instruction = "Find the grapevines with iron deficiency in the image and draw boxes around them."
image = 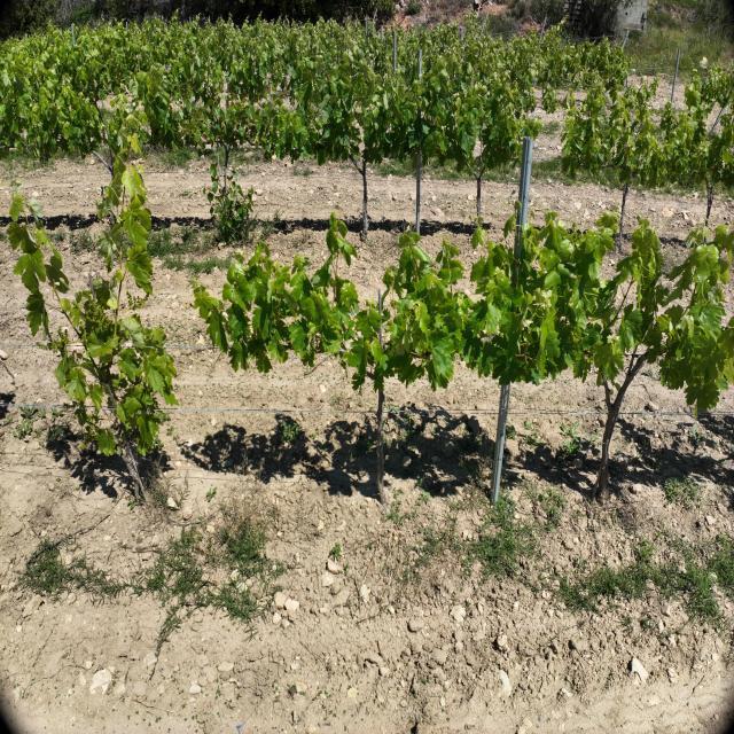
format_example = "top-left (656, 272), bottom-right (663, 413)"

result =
top-left (183, 221), bottom-right (556, 525)
top-left (502, 209), bottom-right (734, 521)
top-left (1, 149), bottom-right (185, 516)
